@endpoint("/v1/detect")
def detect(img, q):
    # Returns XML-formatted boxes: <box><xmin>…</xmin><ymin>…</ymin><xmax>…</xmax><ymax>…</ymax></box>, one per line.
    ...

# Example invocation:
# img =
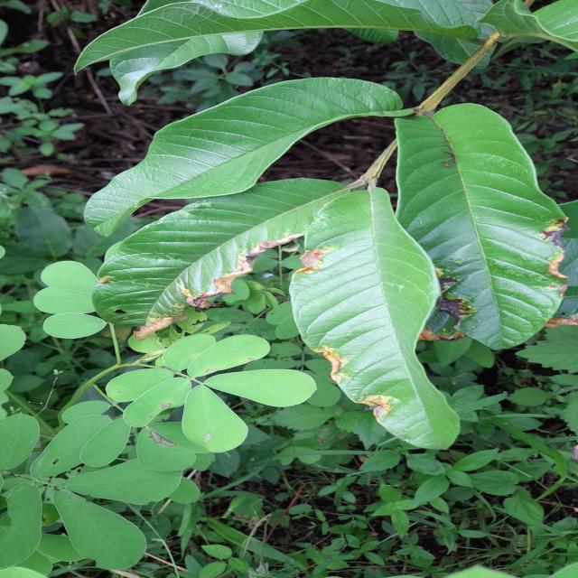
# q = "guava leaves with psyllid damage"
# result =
<box><xmin>368</xmin><ymin>105</ymin><xmax>578</xmax><ymax>362</ymax></box>
<box><xmin>80</xmin><ymin>160</ymin><xmax>358</xmax><ymax>359</ymax></box>
<box><xmin>271</xmin><ymin>177</ymin><xmax>491</xmax><ymax>467</ymax></box>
